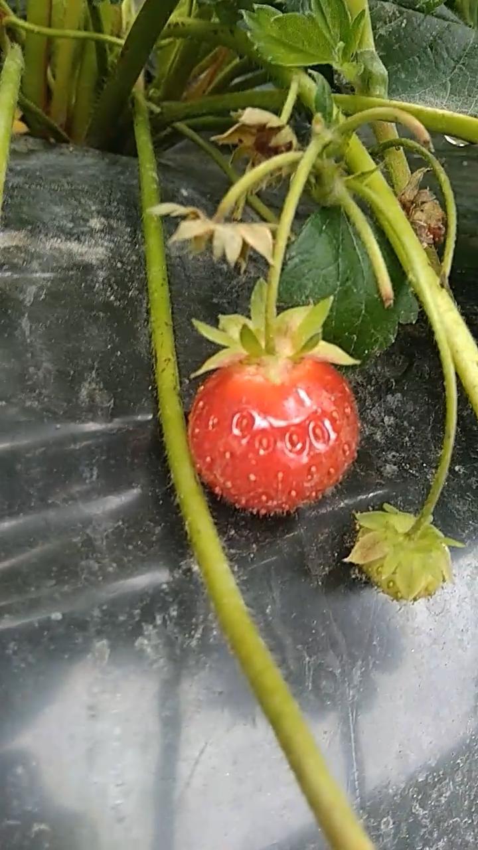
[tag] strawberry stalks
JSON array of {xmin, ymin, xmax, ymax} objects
[
  {"xmin": 414, "ymin": 396, "xmax": 455, "ymax": 552},
  {"xmin": 239, "ymin": 180, "xmax": 313, "ymax": 409}
]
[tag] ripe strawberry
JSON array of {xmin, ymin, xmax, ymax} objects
[{"xmin": 183, "ymin": 351, "xmax": 357, "ymax": 511}]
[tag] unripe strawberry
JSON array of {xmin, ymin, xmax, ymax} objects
[{"xmin": 350, "ymin": 504, "xmax": 462, "ymax": 610}]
